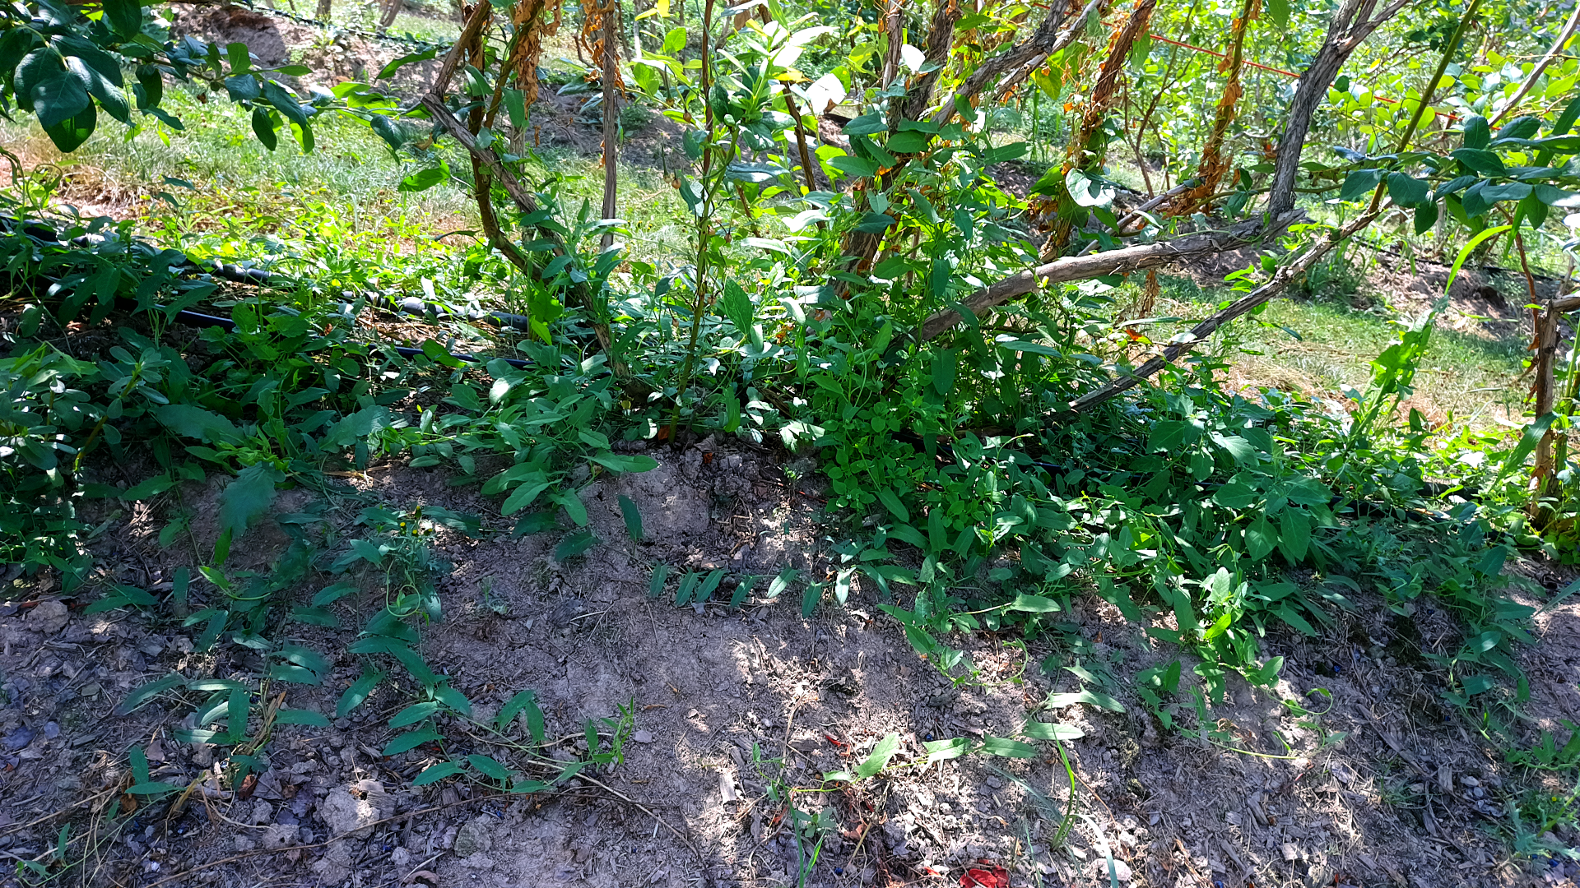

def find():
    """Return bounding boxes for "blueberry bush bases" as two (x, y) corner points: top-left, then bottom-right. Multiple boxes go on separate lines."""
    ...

(461, 172), (1192, 573)
(1477, 339), (1580, 617)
